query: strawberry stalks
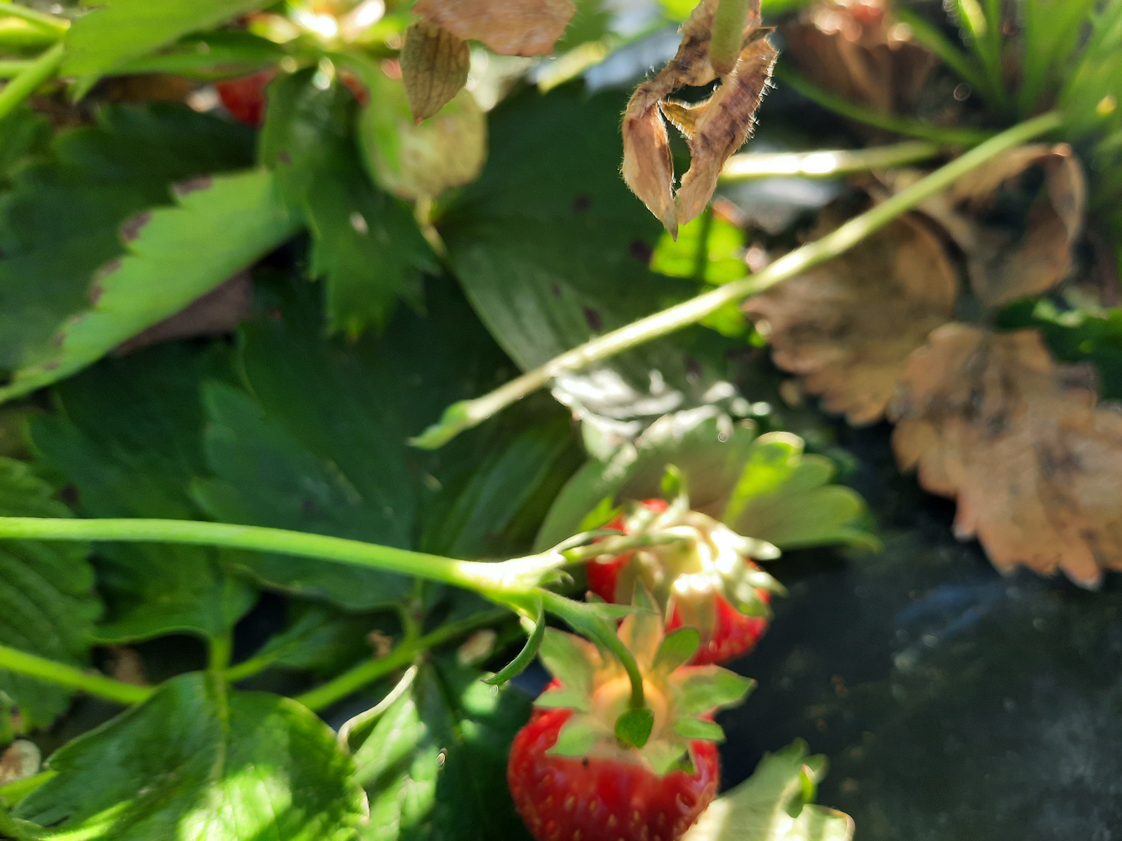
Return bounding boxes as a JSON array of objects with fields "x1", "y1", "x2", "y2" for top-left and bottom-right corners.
[
  {"x1": 501, "y1": 573, "x2": 664, "y2": 734},
  {"x1": 540, "y1": 516, "x2": 719, "y2": 580}
]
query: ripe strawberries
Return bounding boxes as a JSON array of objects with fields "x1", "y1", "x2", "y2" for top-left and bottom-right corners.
[
  {"x1": 514, "y1": 673, "x2": 709, "y2": 841},
  {"x1": 586, "y1": 504, "x2": 767, "y2": 655}
]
